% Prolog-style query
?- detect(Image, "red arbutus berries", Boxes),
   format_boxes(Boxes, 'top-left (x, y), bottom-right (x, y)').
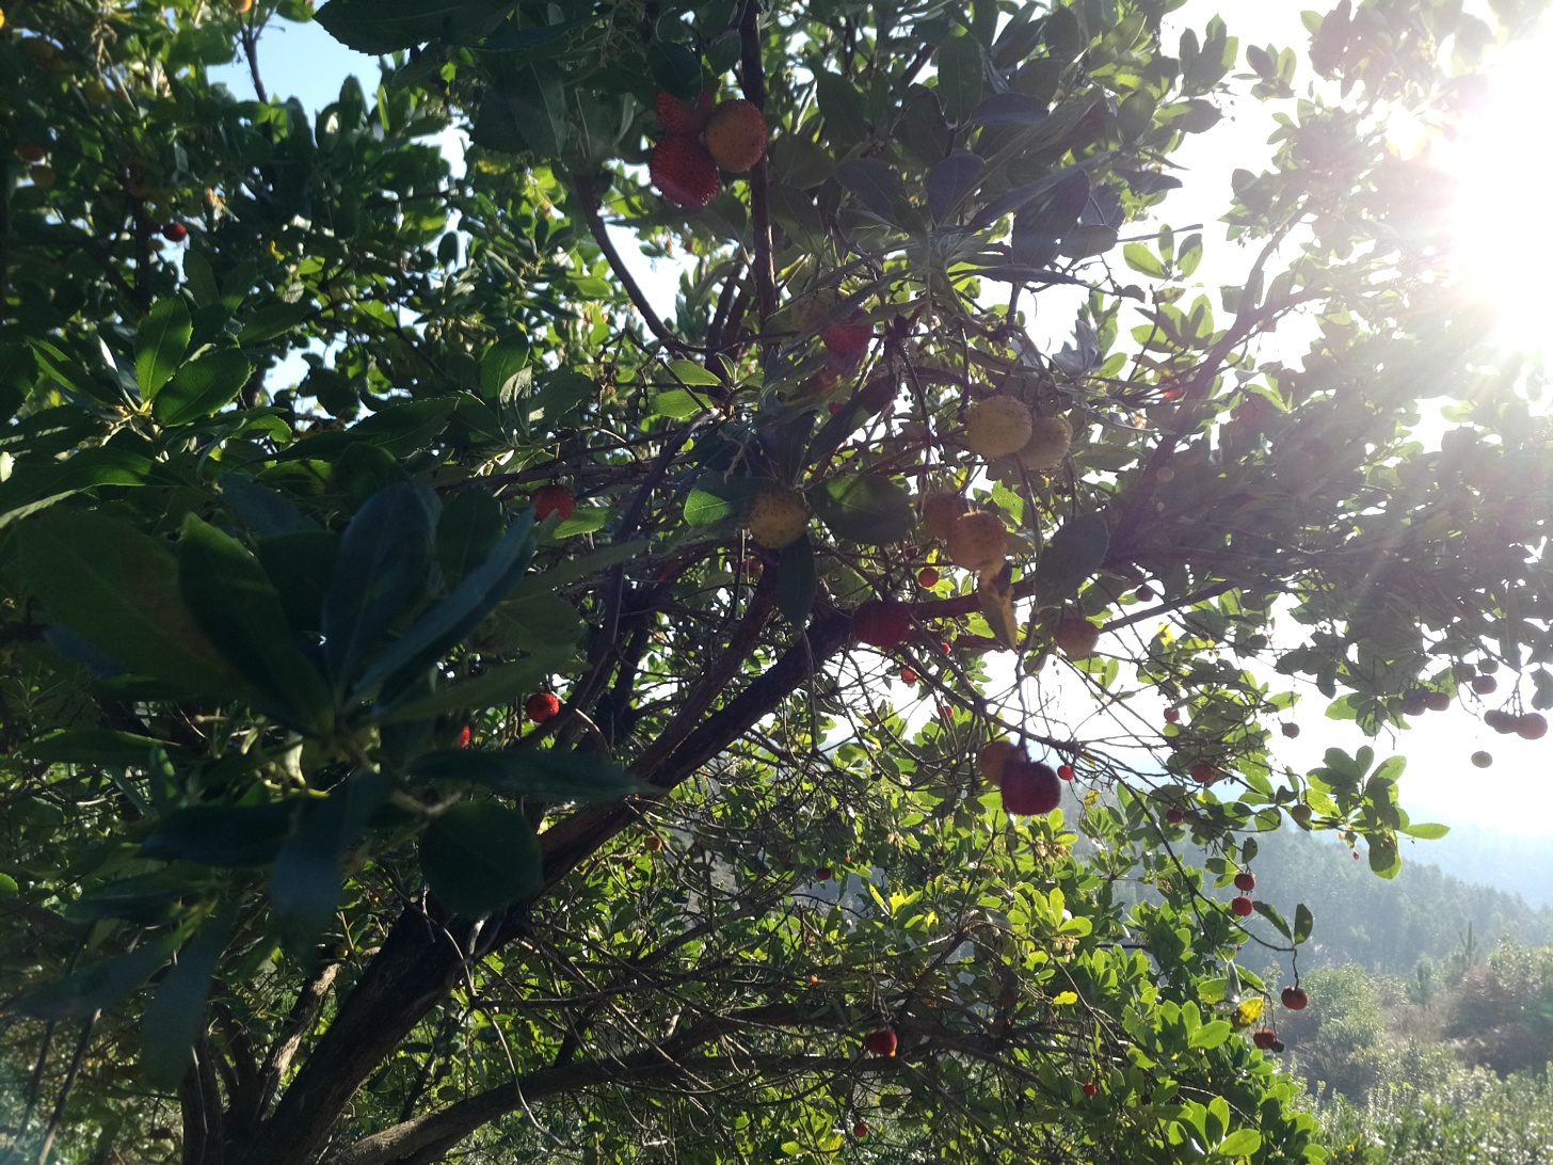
top-left (822, 306), bottom-right (872, 359)
top-left (855, 597), bottom-right (914, 647)
top-left (816, 867), bottom-right (831, 881)
top-left (654, 70), bottom-right (713, 142)
top-left (853, 1122), bottom-right (870, 1138)
top-left (1163, 707), bottom-right (1179, 722)
top-left (901, 667), bottom-right (918, 683)
top-left (1282, 985), bottom-right (1307, 1009)
top-left (1191, 763), bottom-right (1212, 784)
top-left (1058, 764), bottom-right (1074, 780)
top-left (646, 133), bottom-right (722, 210)
top-left (919, 568), bottom-right (938, 587)
top-left (940, 643), bottom-right (950, 655)
top-left (1001, 761), bottom-right (1061, 814)
top-left (1233, 897), bottom-right (1252, 917)
top-left (529, 483), bottom-right (575, 522)
top-left (1081, 1083), bottom-right (1098, 1096)
top-left (1234, 873), bottom-right (1255, 892)
top-left (164, 223), bottom-right (186, 242)
top-left (527, 693), bottom-right (561, 722)
top-left (1252, 1030), bottom-right (1276, 1048)
top-left (864, 1029), bottom-right (898, 1056)
top-left (1165, 808), bottom-right (1183, 823)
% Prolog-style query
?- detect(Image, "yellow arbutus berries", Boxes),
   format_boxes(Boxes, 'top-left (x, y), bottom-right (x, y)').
top-left (644, 837), bottom-right (662, 851)
top-left (923, 497), bottom-right (964, 537)
top-left (979, 741), bottom-right (1024, 786)
top-left (1056, 617), bottom-right (1100, 659)
top-left (702, 95), bottom-right (773, 180)
top-left (947, 511), bottom-right (1008, 569)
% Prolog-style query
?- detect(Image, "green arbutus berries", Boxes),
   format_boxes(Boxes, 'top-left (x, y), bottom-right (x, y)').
top-left (1021, 418), bottom-right (1074, 471)
top-left (747, 488), bottom-right (809, 551)
top-left (967, 394), bottom-right (1033, 462)
top-left (1184, 811), bottom-right (1199, 823)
